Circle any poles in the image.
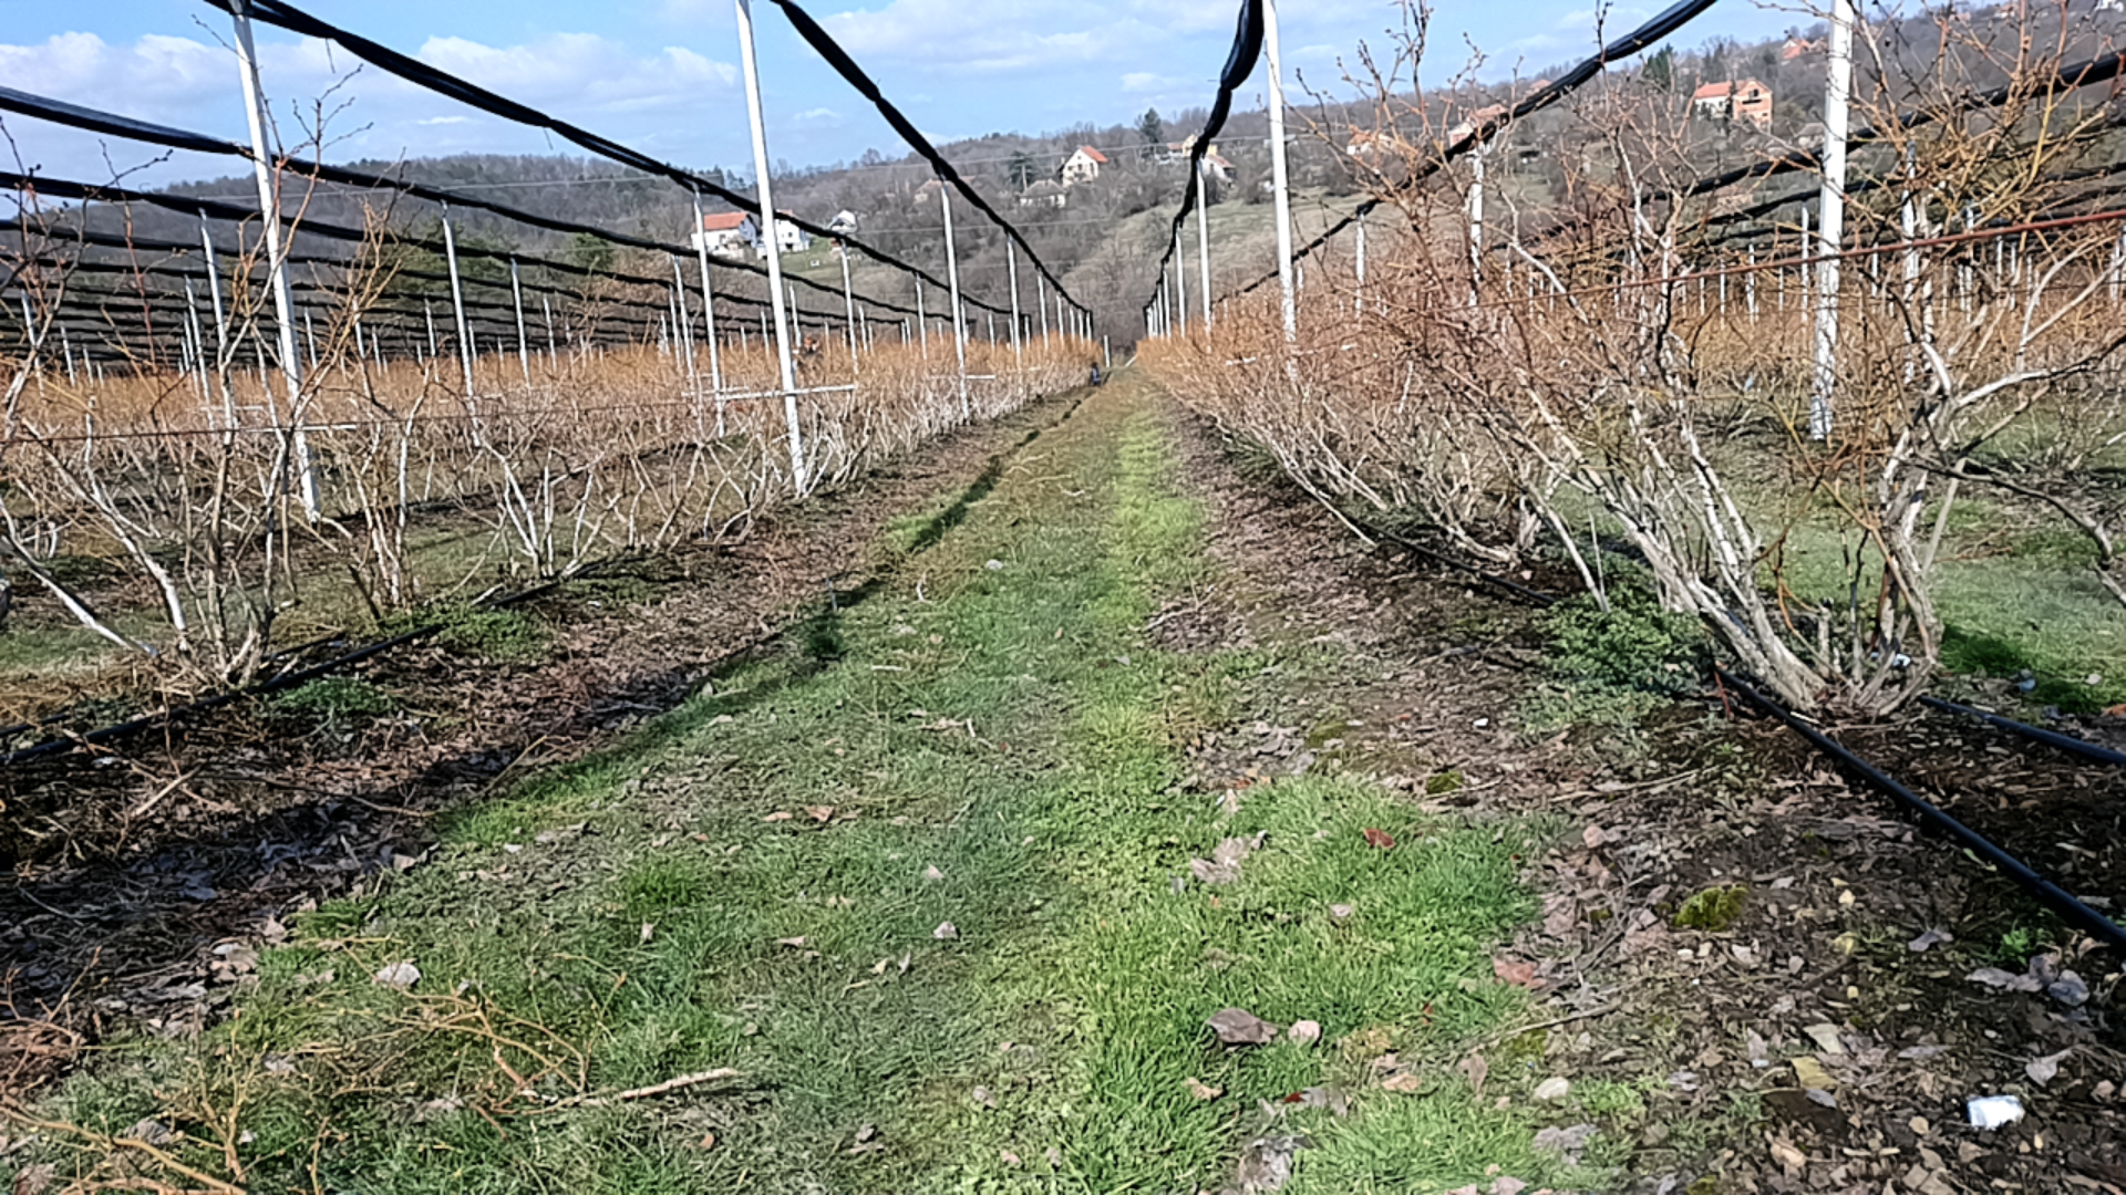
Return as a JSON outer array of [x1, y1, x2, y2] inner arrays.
[[1802, 6, 1857, 435], [223, 14, 325, 523], [731, 4, 815, 502], [1253, 3, 1305, 403]]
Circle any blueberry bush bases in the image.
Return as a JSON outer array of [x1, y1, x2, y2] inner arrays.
[[1436, 473, 1581, 601], [683, 486, 765, 566], [1623, 509, 1969, 770], [332, 549, 470, 666], [460, 512, 599, 624], [597, 515, 700, 592], [1576, 548, 1739, 658], [79, 563, 330, 752]]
